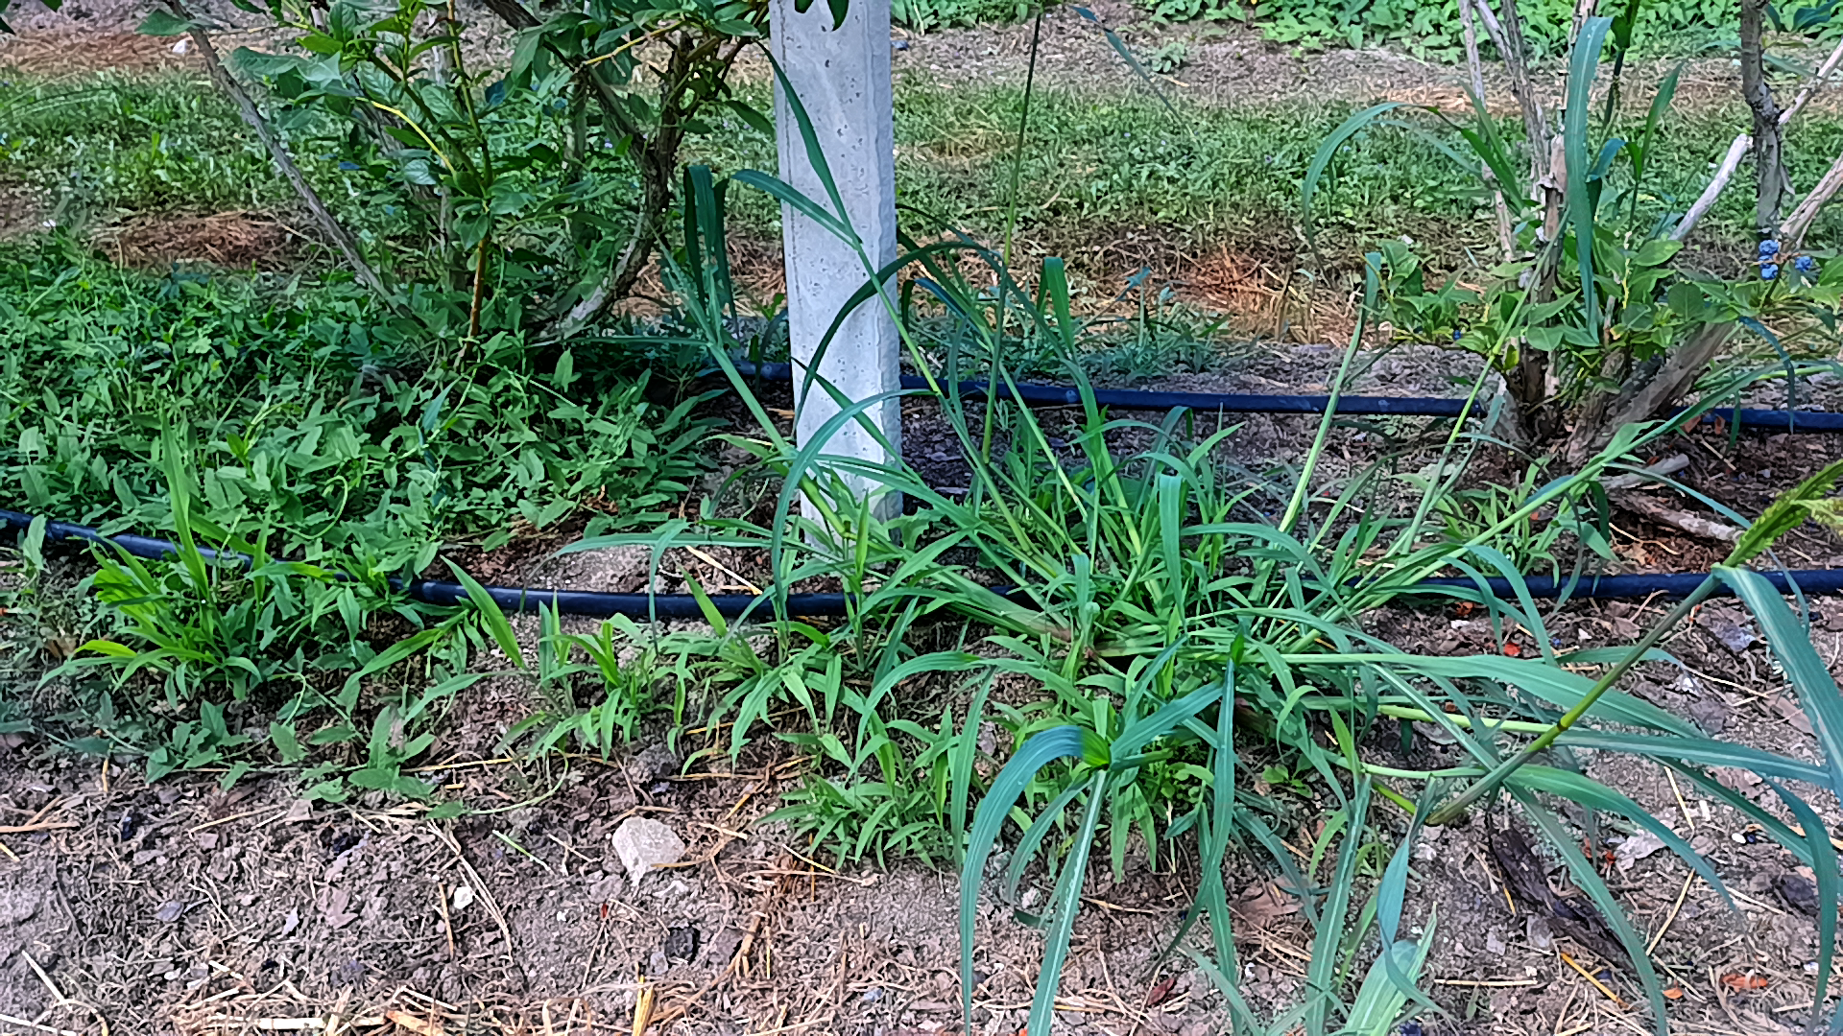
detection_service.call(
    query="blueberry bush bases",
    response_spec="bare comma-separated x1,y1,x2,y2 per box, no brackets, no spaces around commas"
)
242,110,706,507
1423,181,1776,600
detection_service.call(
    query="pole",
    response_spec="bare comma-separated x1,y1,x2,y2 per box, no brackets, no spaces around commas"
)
762,3,940,526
